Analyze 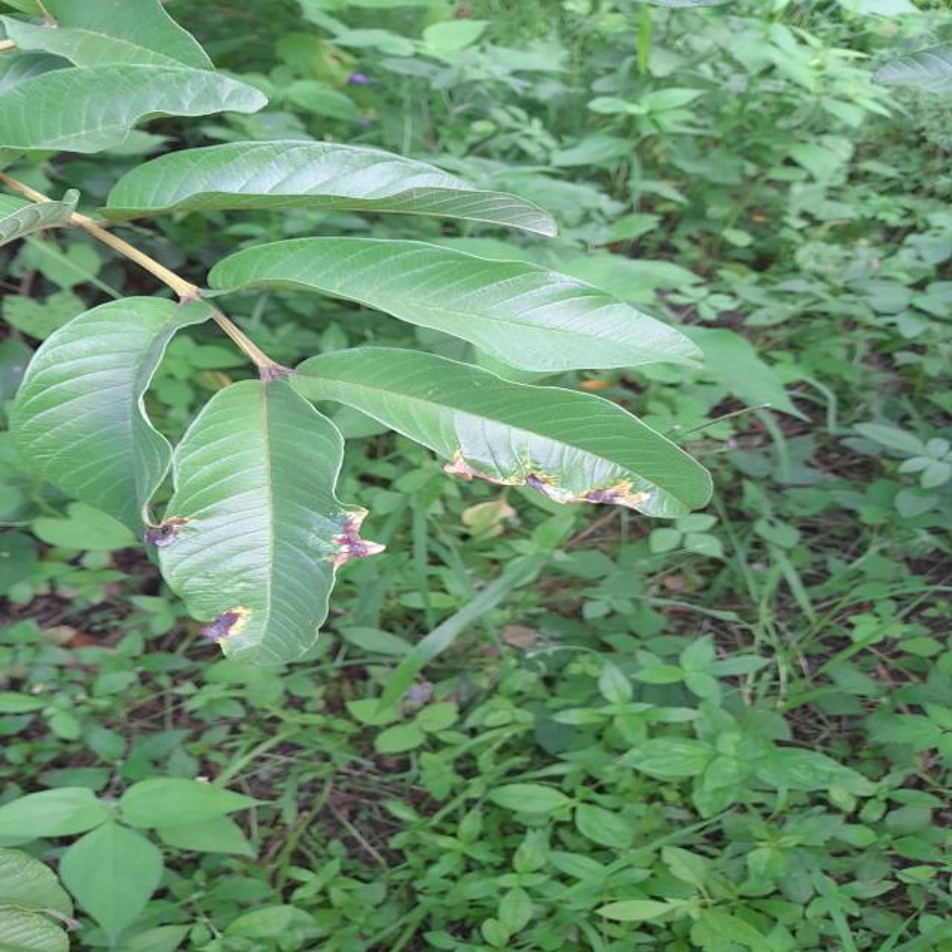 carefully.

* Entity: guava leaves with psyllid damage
[137,369,373,673]
[263,333,754,532]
